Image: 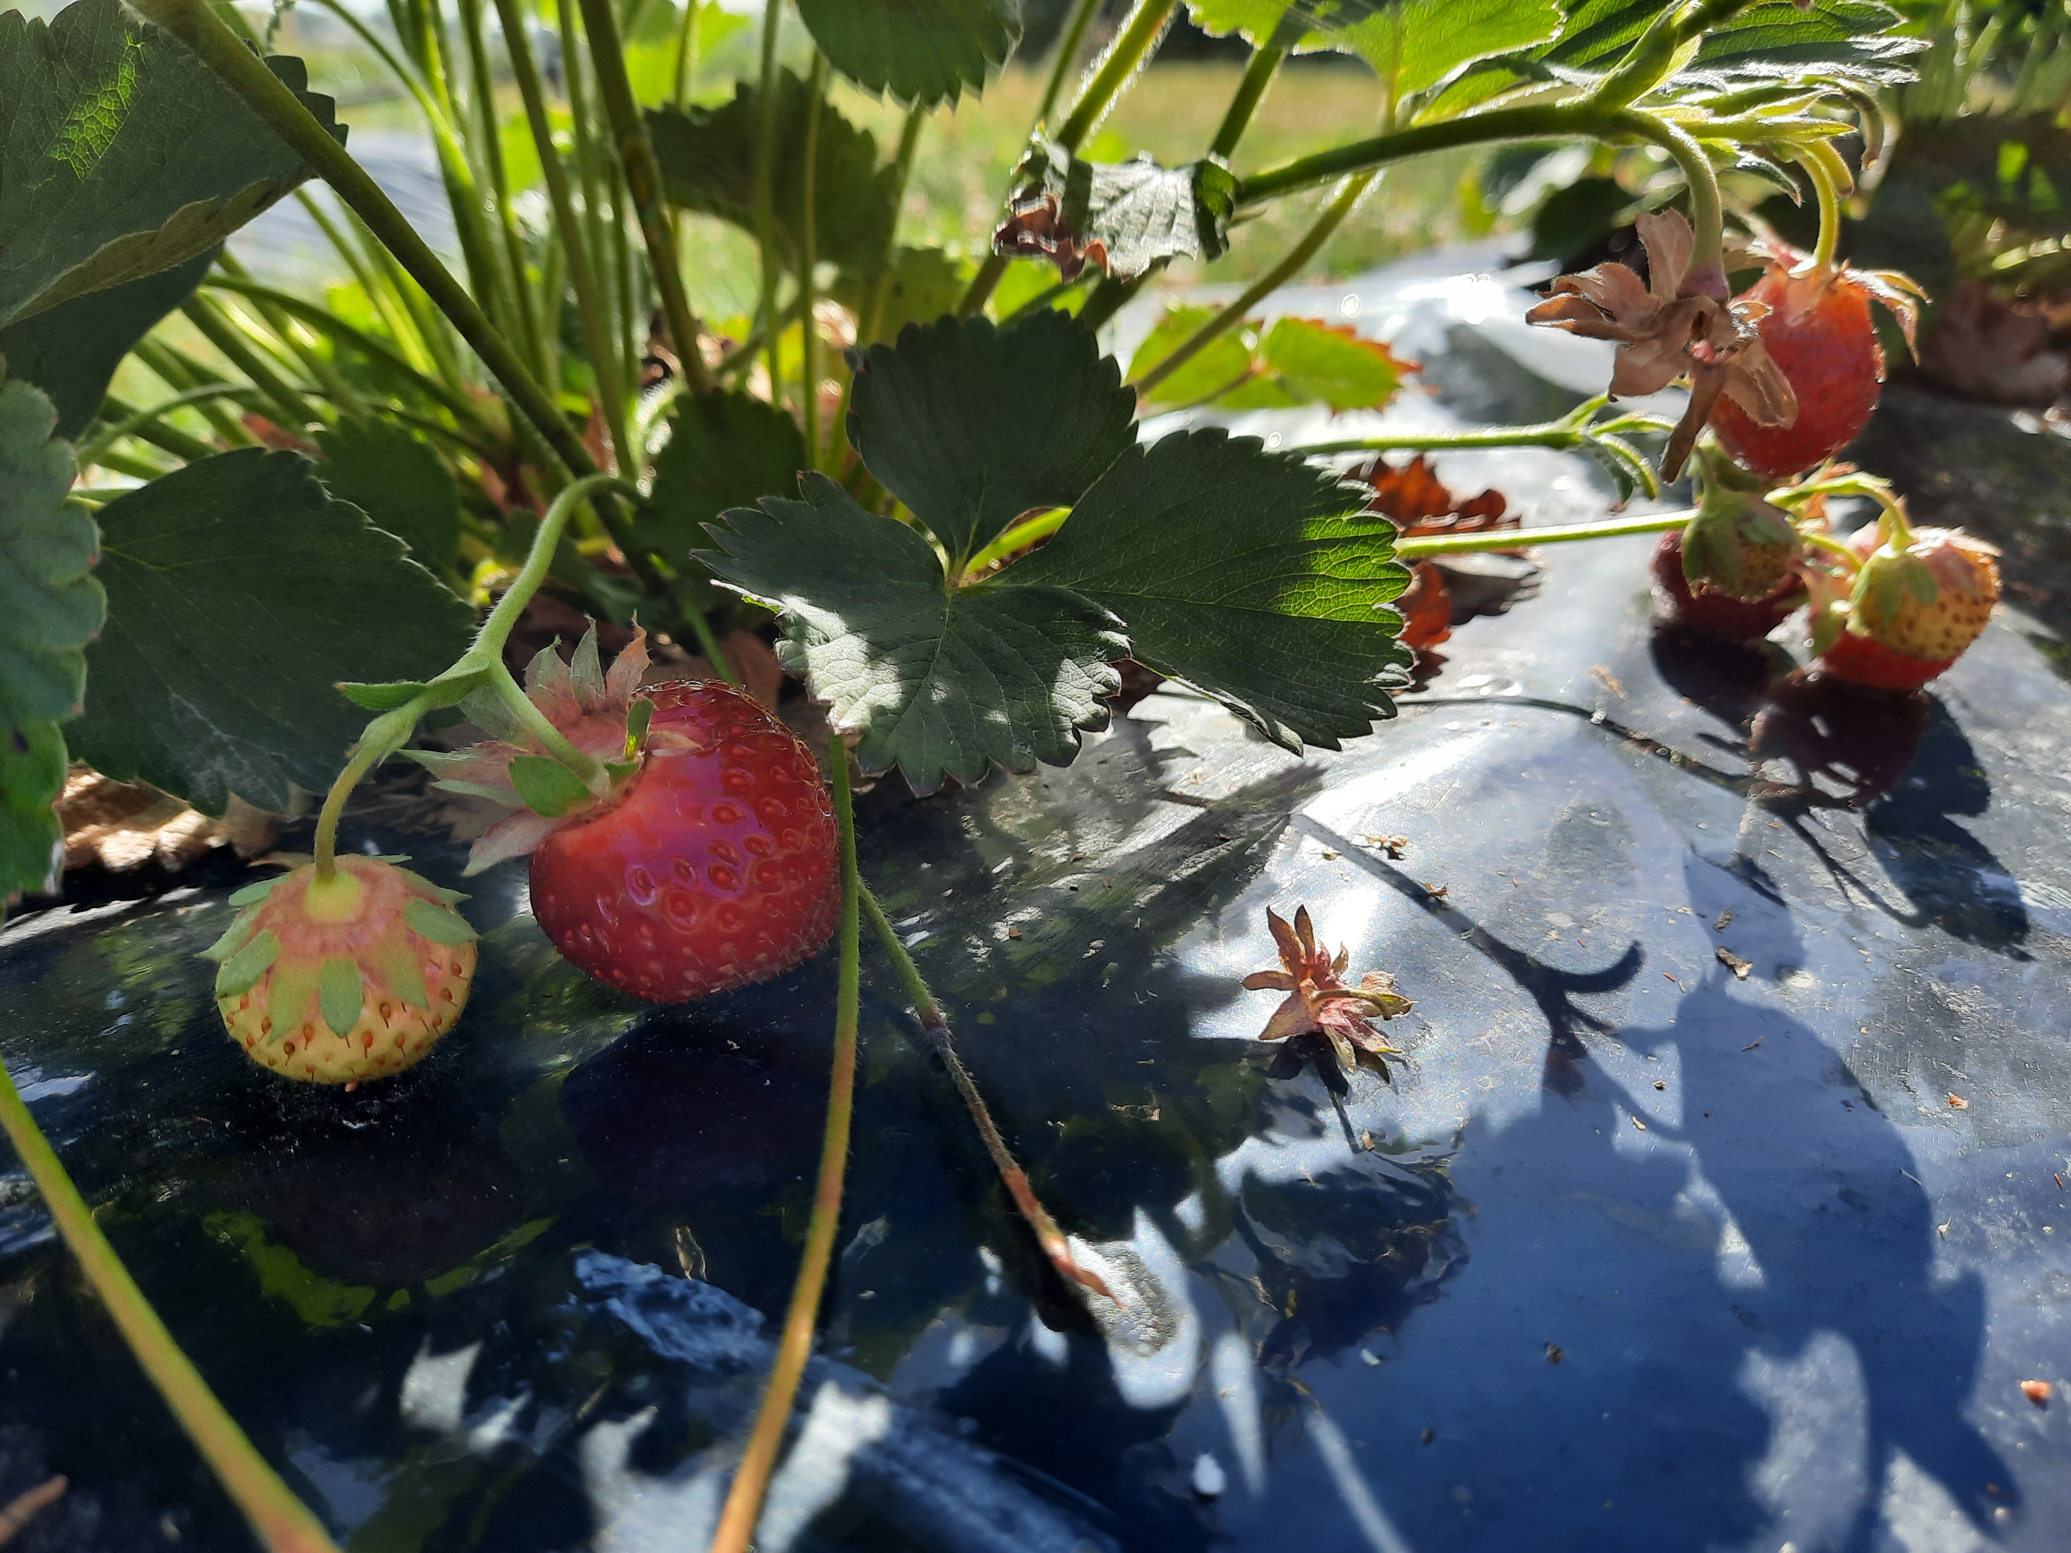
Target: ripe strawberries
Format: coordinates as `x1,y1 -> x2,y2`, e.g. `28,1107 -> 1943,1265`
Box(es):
1709,284 -> 1909,467
522,689 -> 845,981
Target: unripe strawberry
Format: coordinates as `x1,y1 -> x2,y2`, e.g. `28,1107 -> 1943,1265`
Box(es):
217,836 -> 476,1091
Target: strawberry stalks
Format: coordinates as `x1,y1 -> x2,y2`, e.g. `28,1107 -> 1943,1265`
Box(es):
459,630 -> 620,799
303,685 -> 442,899
1780,132 -> 1888,334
